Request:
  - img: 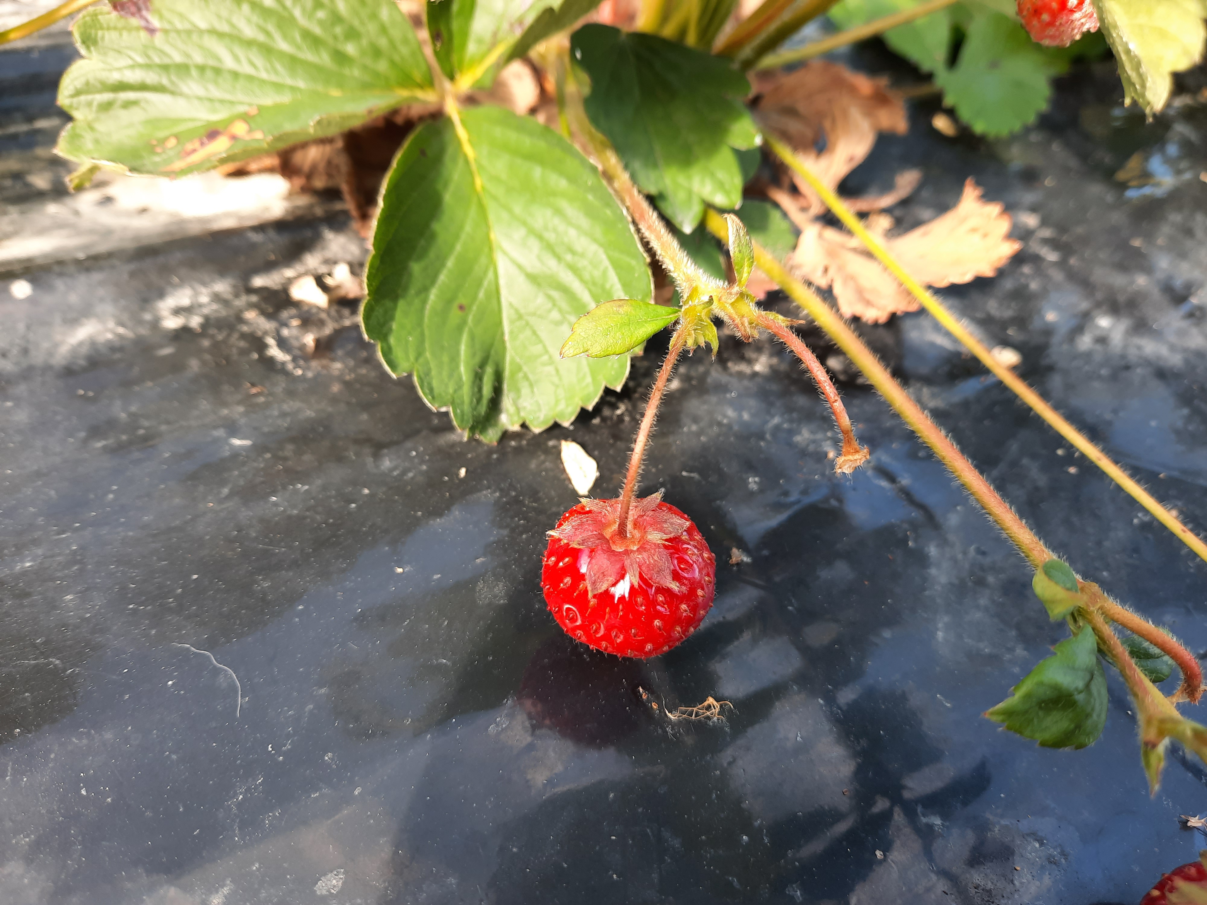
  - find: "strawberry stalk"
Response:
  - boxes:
[614,344,687,590]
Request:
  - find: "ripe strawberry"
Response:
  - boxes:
[548,493,717,649]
